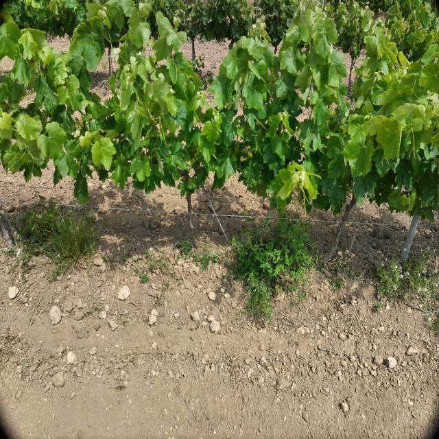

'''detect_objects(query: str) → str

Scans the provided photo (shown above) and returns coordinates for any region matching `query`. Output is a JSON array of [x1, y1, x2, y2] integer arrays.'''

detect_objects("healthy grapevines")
[[0, 0, 239, 237], [243, 0, 439, 272]]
